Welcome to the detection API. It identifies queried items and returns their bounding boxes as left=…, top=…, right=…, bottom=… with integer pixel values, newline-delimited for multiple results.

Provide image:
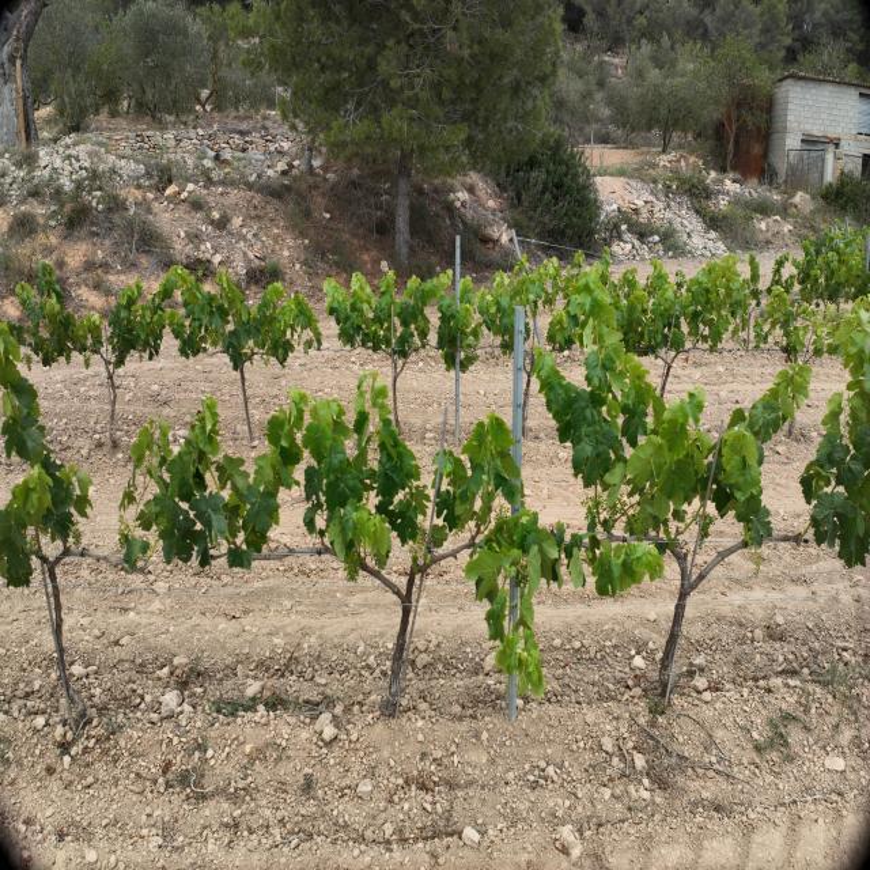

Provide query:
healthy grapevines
left=201, top=377, right=555, bottom=738
left=529, top=349, right=870, bottom=735
left=0, top=391, right=227, bottom=764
